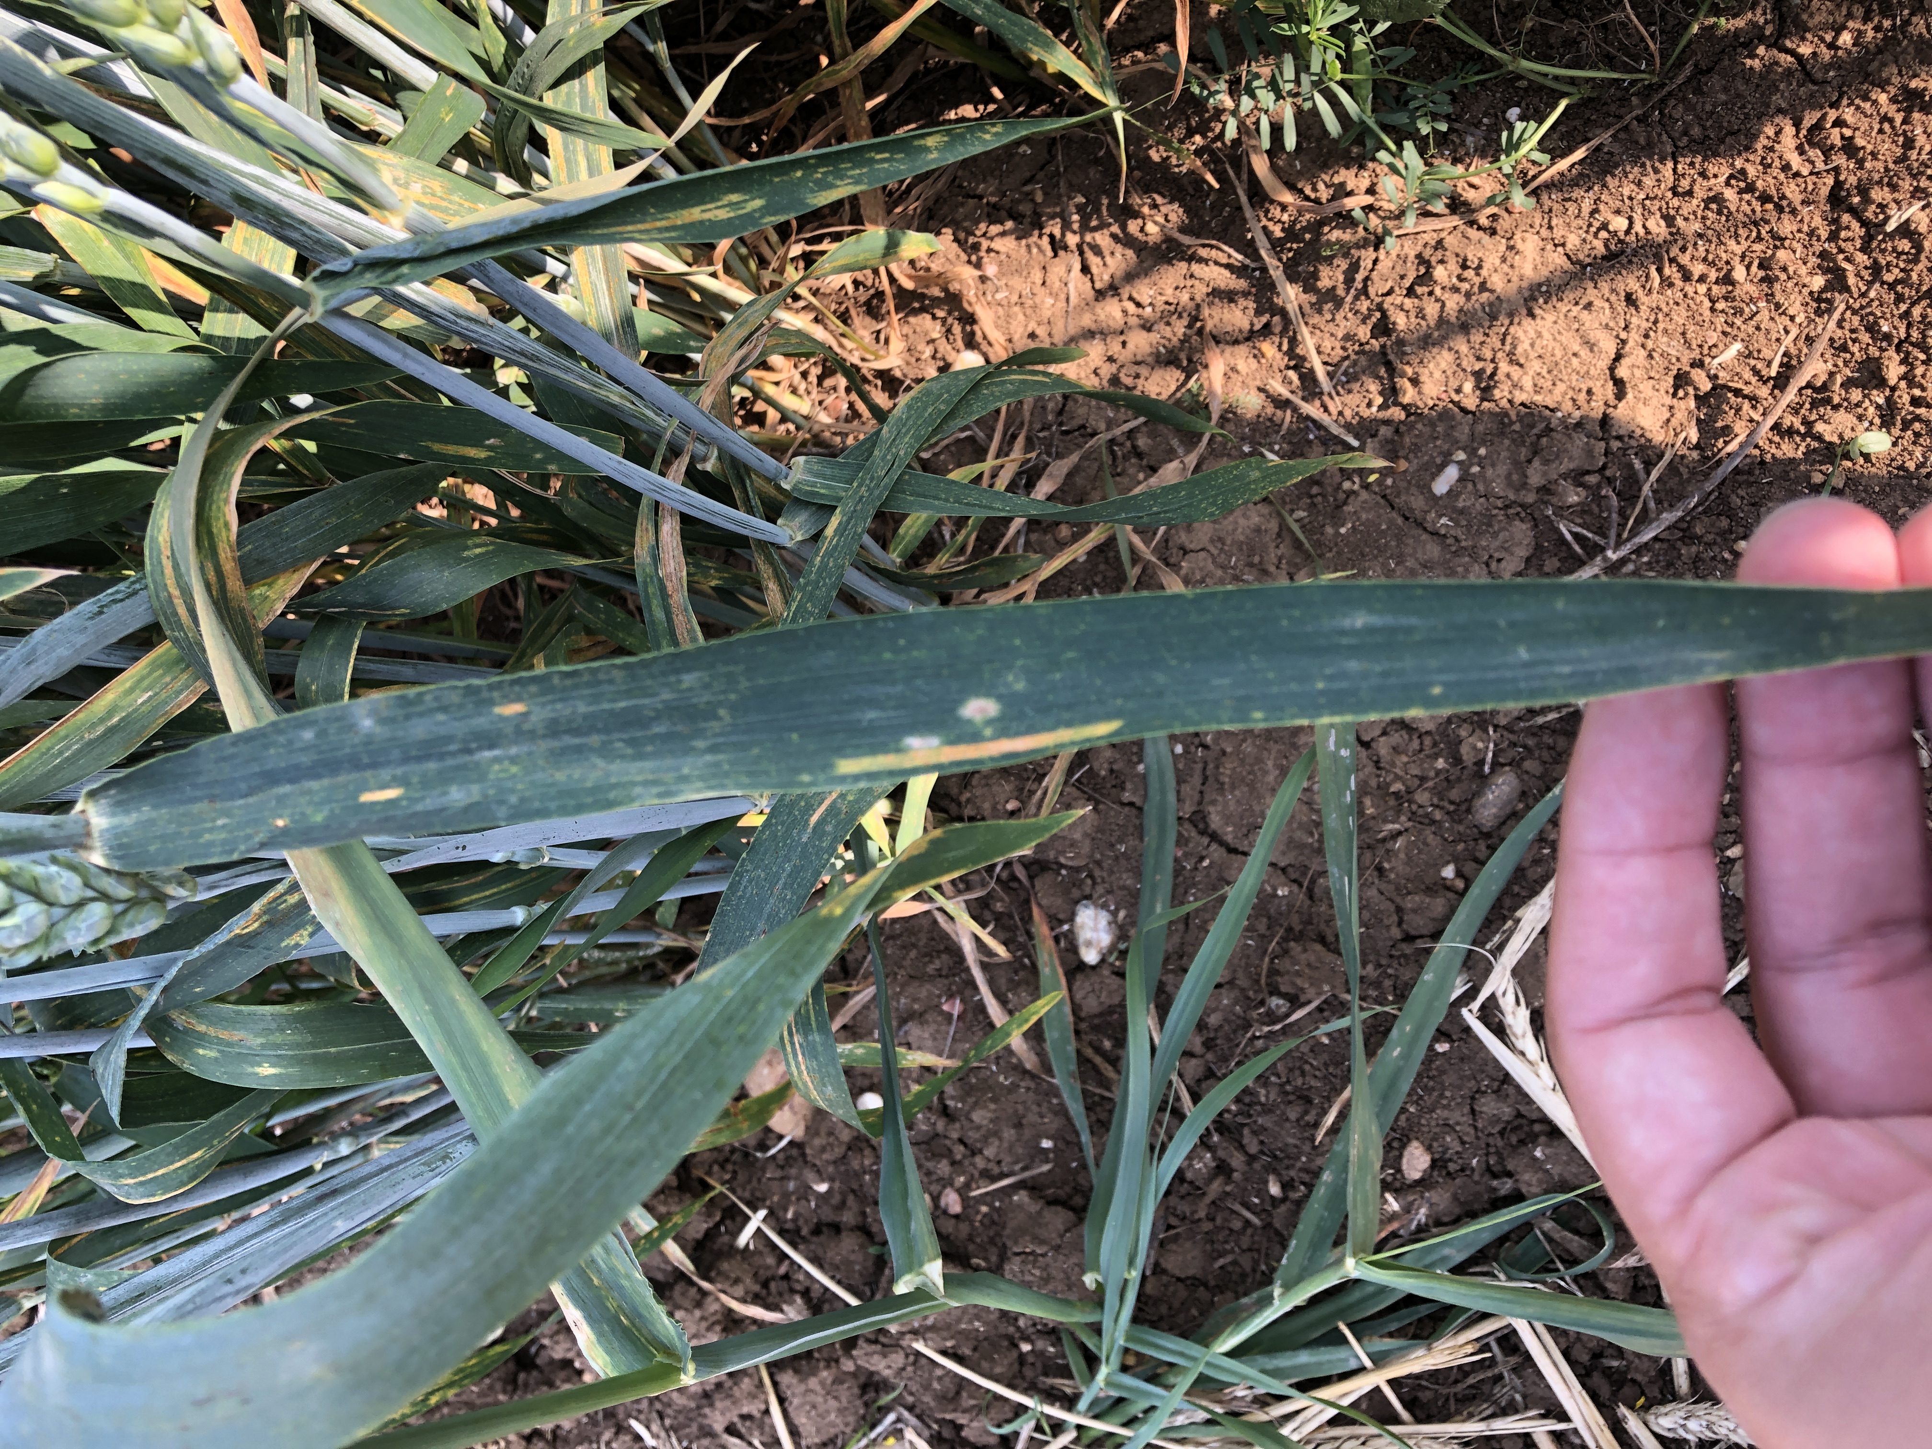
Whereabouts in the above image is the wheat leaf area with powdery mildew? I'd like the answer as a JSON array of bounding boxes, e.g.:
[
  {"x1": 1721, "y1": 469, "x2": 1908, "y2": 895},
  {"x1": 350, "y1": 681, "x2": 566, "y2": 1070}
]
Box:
[{"x1": 893, "y1": 626, "x2": 1053, "y2": 762}]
